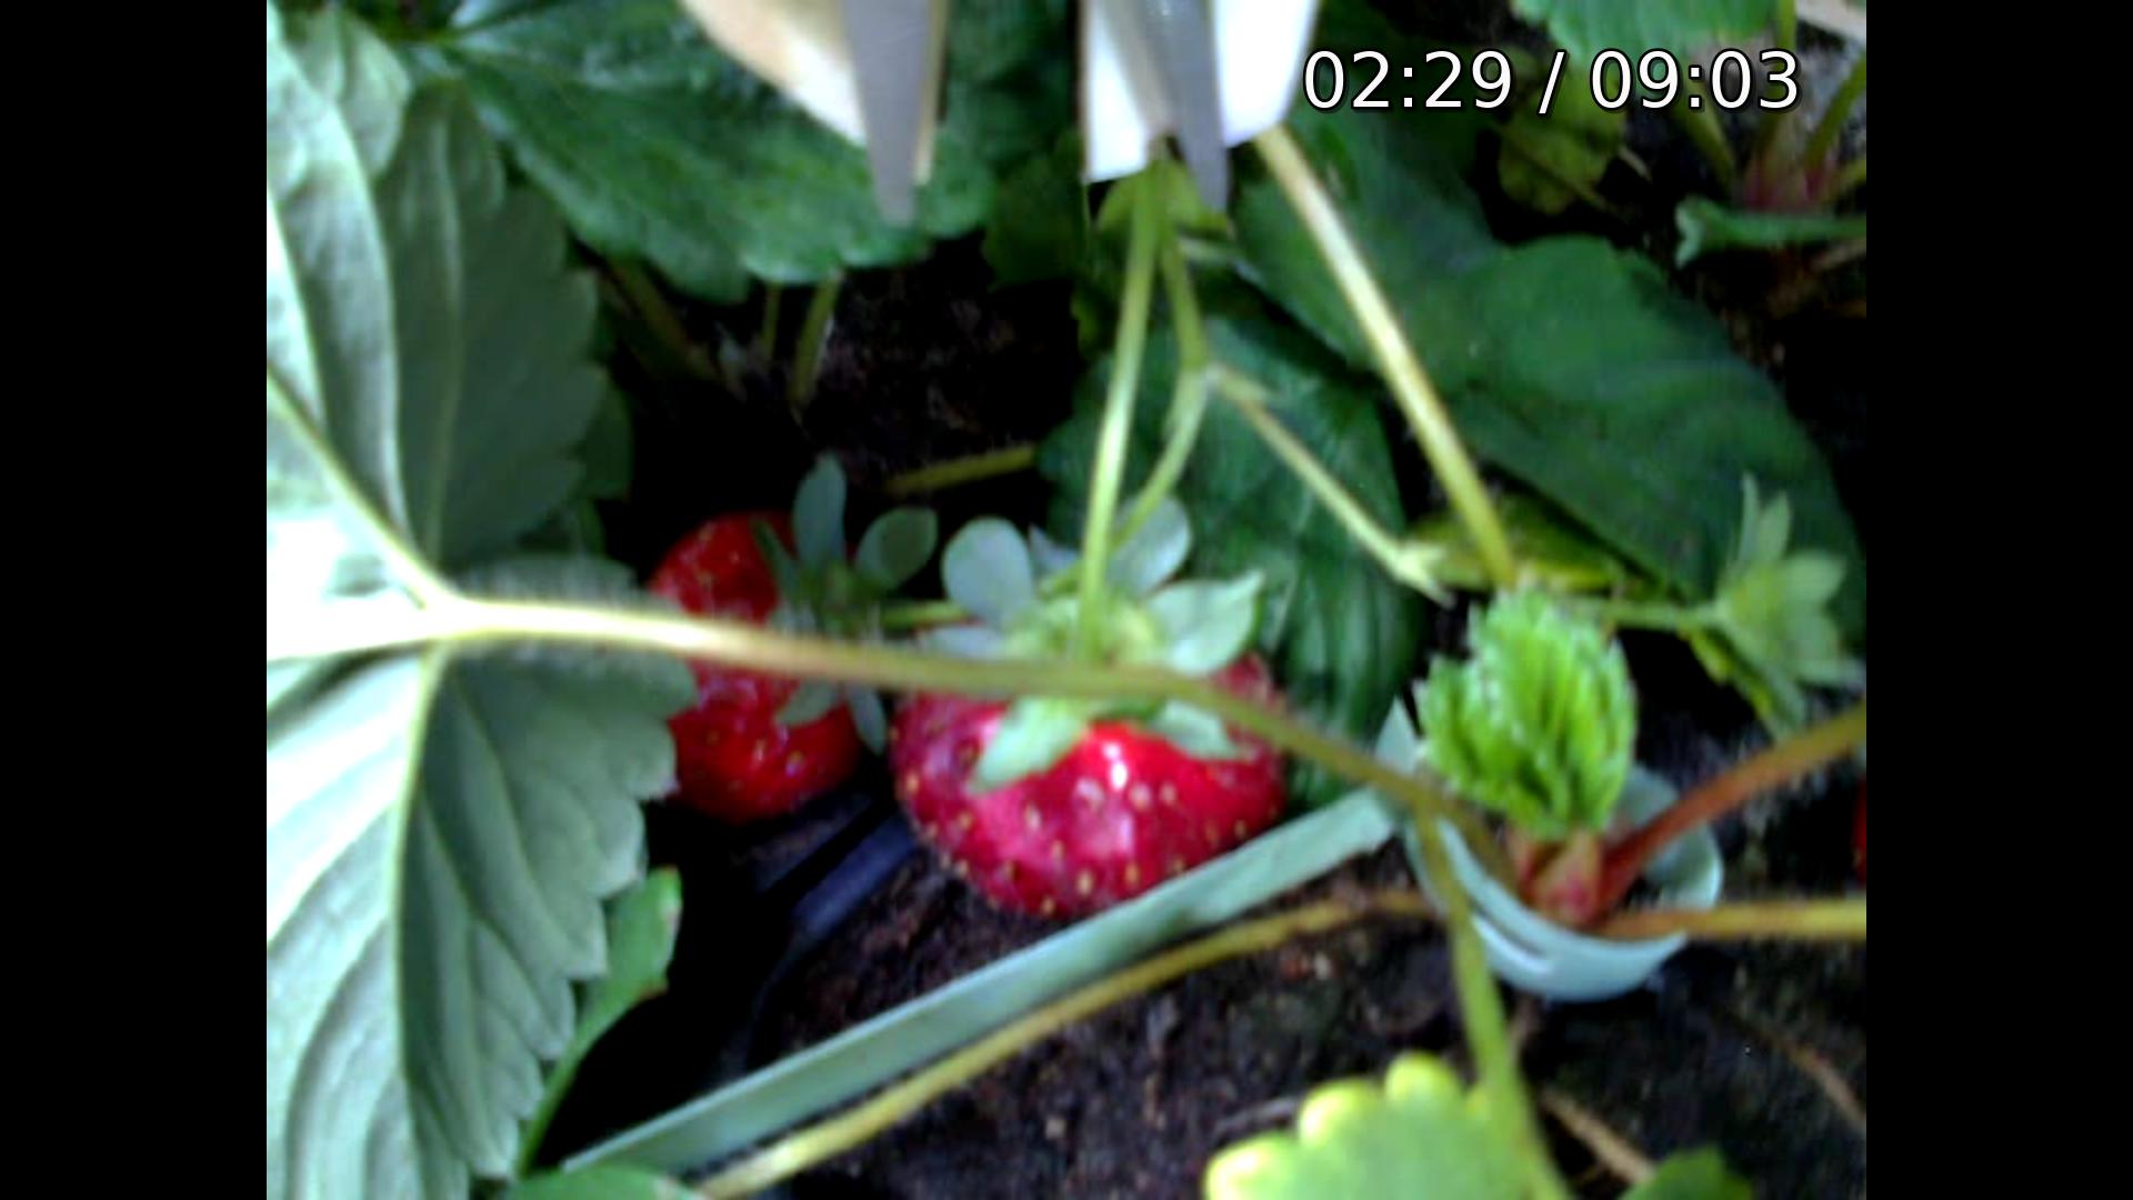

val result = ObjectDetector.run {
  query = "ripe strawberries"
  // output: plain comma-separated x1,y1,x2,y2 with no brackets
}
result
892,609,1290,922
569,473,917,803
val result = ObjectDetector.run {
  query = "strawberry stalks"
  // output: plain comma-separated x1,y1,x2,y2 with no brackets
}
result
794,543,1060,677
1068,249,1159,811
